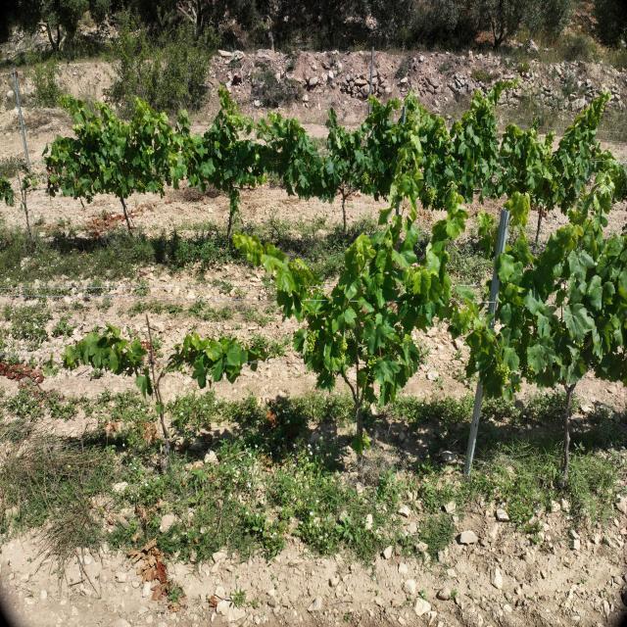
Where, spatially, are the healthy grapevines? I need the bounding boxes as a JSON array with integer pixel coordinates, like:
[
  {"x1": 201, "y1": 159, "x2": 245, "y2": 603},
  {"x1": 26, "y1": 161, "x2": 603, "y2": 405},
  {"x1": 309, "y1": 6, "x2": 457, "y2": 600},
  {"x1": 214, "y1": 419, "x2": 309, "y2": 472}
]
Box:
[
  {"x1": 232, "y1": 200, "x2": 465, "y2": 490},
  {"x1": 466, "y1": 220, "x2": 627, "y2": 500},
  {"x1": 54, "y1": 320, "x2": 269, "y2": 463}
]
